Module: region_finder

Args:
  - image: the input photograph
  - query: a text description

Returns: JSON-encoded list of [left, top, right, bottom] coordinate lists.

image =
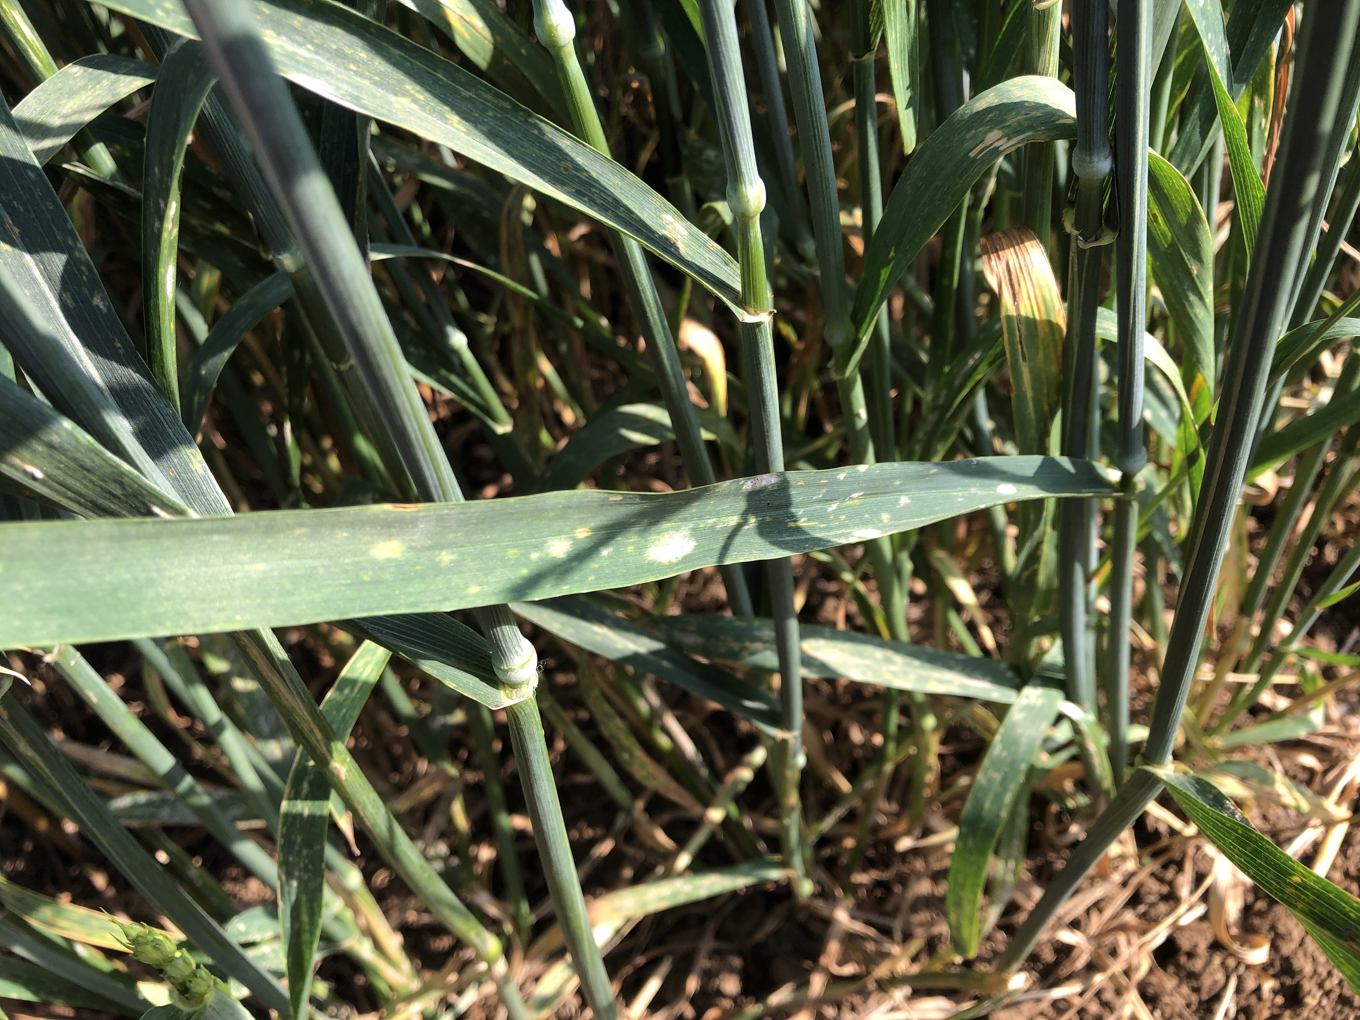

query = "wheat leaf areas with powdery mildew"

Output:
[[0, 165, 223, 488], [262, 773, 331, 969], [45, 38, 160, 154], [1182, 0, 1250, 106], [958, 78, 1083, 188], [340, 454, 1058, 624], [983, 665, 1020, 879], [8, 445, 66, 489], [262, 0, 486, 131], [0, 710, 68, 789], [788, 616, 1036, 707]]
